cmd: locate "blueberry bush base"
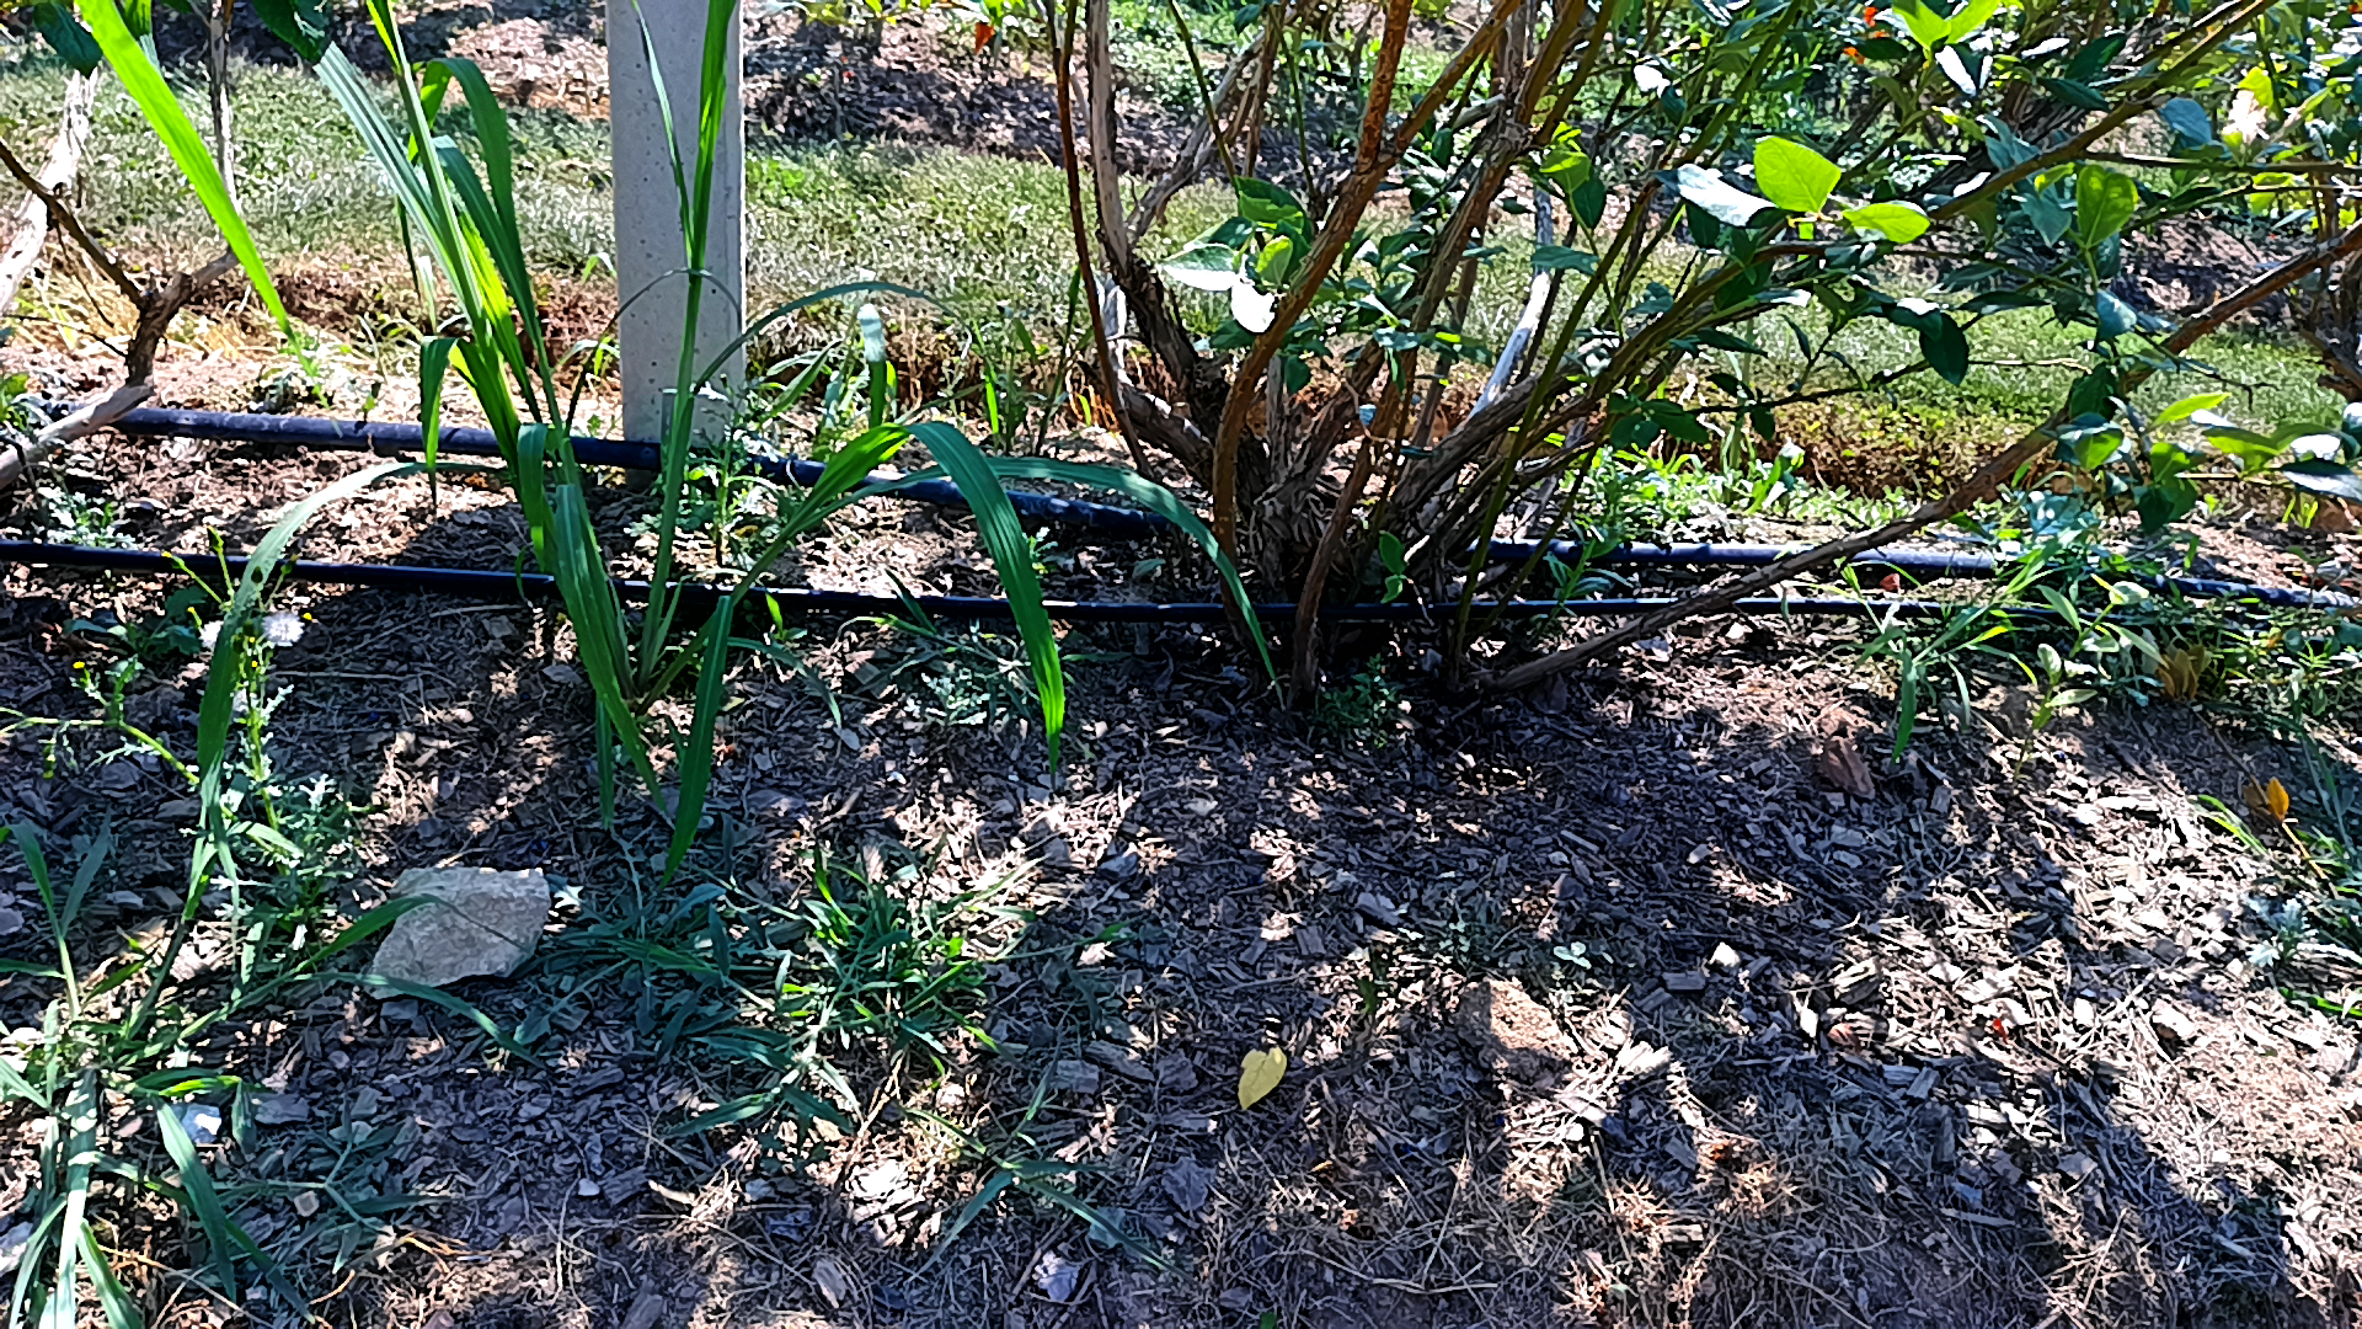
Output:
[1056,304,1729,850]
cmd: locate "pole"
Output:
[588,0,757,477]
